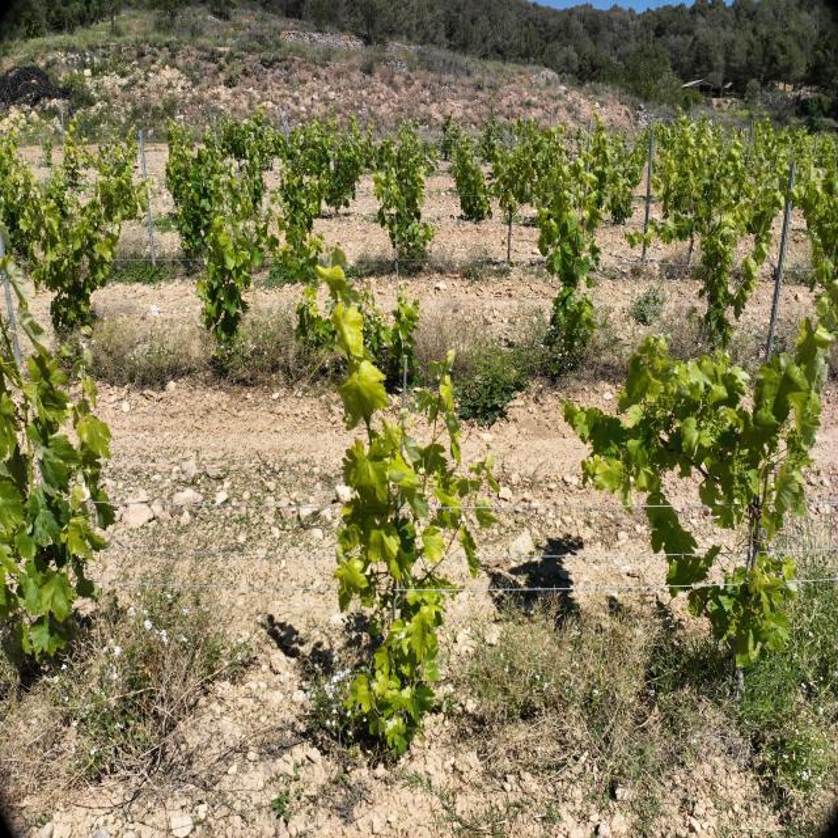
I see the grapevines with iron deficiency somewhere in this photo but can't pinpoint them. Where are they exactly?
[0,298,124,692]
[558,270,838,707]
[299,255,494,771]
